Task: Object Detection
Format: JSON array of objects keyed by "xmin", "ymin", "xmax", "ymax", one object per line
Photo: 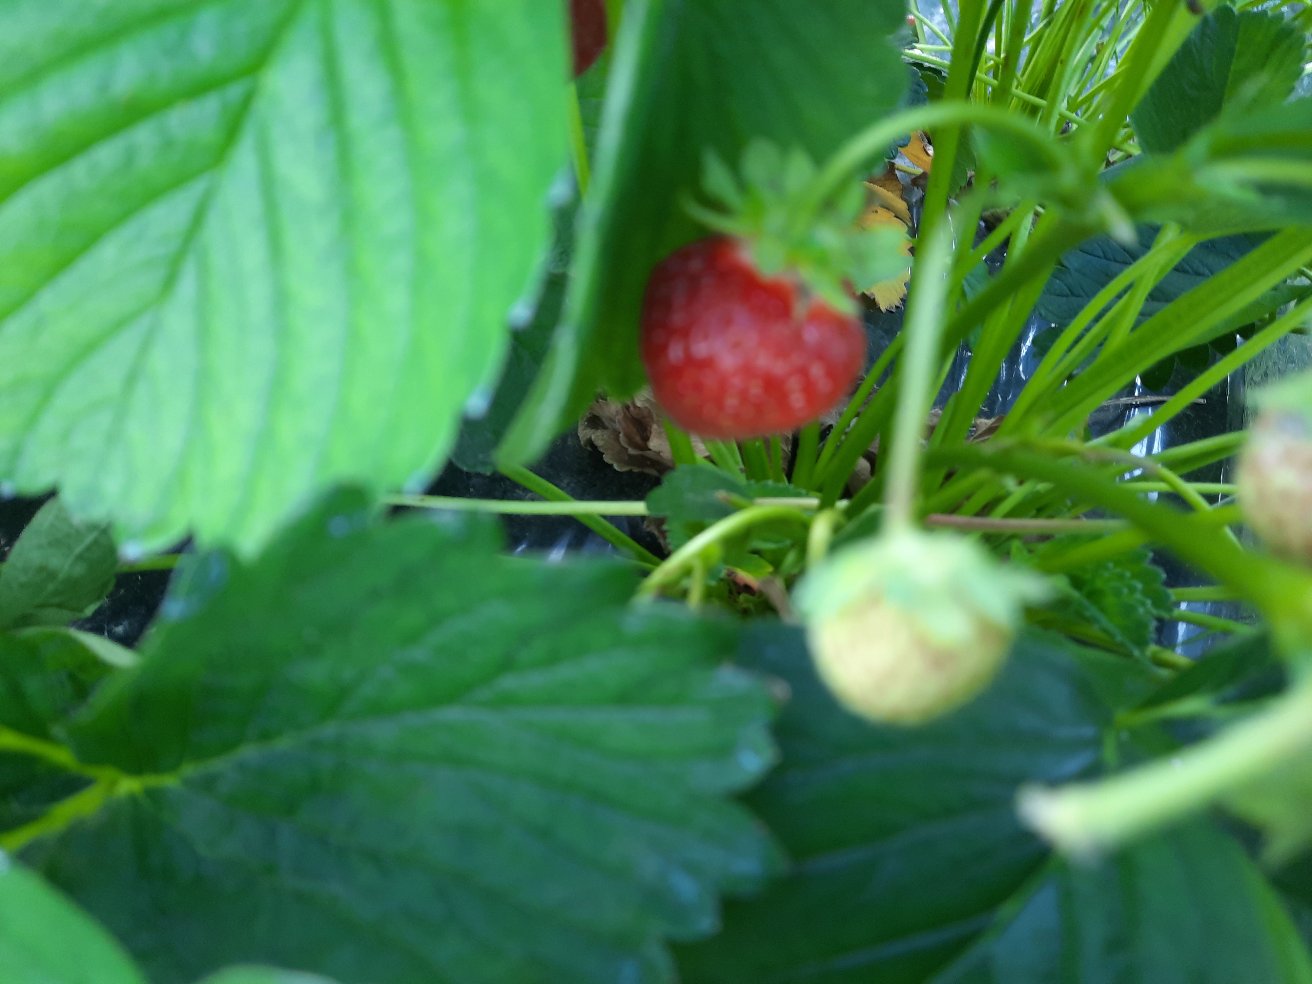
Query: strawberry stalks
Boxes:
[
  {"xmin": 708, "ymin": 86, "xmax": 1040, "ymax": 293},
  {"xmin": 865, "ymin": 228, "xmax": 950, "ymax": 555}
]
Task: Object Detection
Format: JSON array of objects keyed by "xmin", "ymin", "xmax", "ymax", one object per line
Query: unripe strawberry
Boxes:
[{"xmin": 817, "ymin": 540, "xmax": 1015, "ymax": 728}]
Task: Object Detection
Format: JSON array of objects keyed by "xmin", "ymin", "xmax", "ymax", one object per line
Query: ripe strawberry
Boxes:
[{"xmin": 648, "ymin": 243, "xmax": 869, "ymax": 427}]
